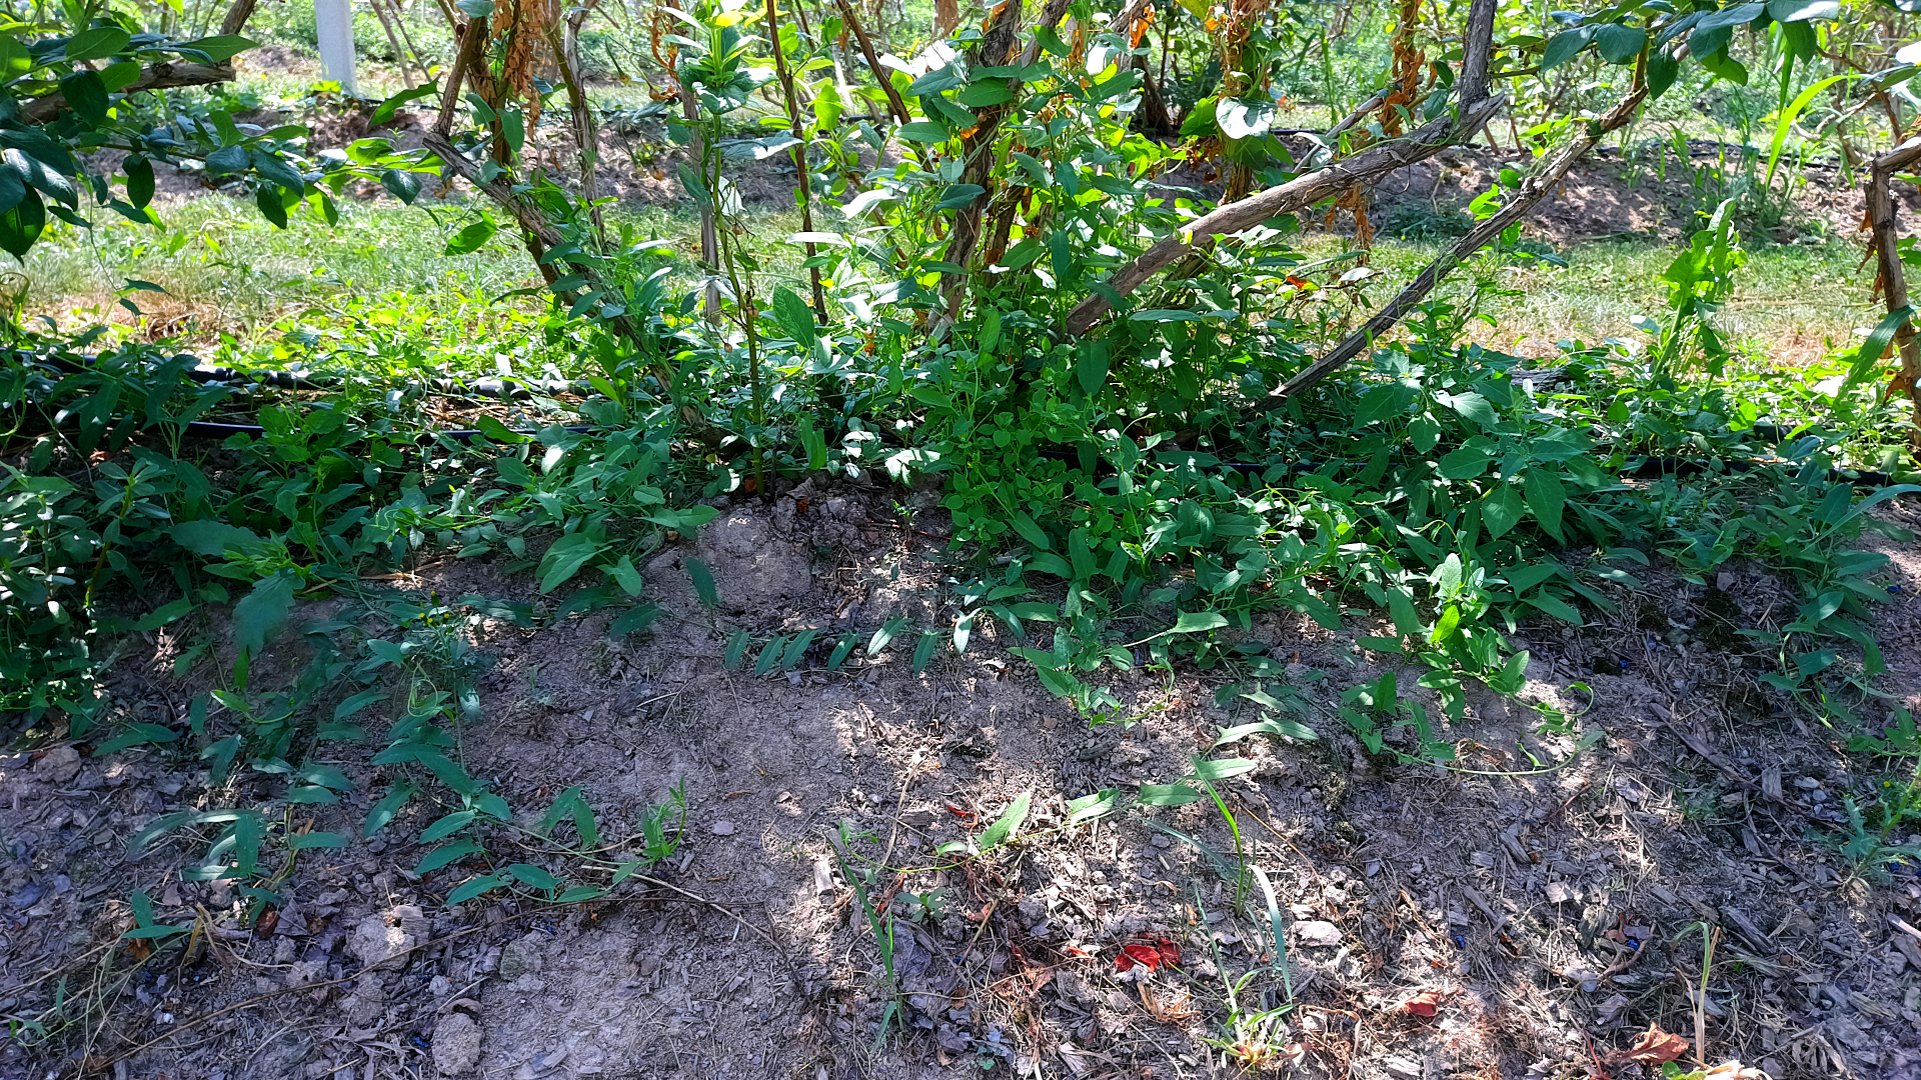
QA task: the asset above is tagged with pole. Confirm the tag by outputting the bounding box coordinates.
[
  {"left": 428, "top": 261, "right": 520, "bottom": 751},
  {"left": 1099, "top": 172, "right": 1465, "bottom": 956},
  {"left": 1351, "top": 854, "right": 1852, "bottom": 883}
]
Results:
[{"left": 310, "top": 8, "right": 365, "bottom": 111}]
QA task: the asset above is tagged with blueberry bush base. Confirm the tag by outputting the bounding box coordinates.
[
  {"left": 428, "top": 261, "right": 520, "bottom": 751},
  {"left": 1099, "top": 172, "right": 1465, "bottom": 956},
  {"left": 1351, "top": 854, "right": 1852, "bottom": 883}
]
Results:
[{"left": 567, "top": 213, "right": 1280, "bottom": 551}]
